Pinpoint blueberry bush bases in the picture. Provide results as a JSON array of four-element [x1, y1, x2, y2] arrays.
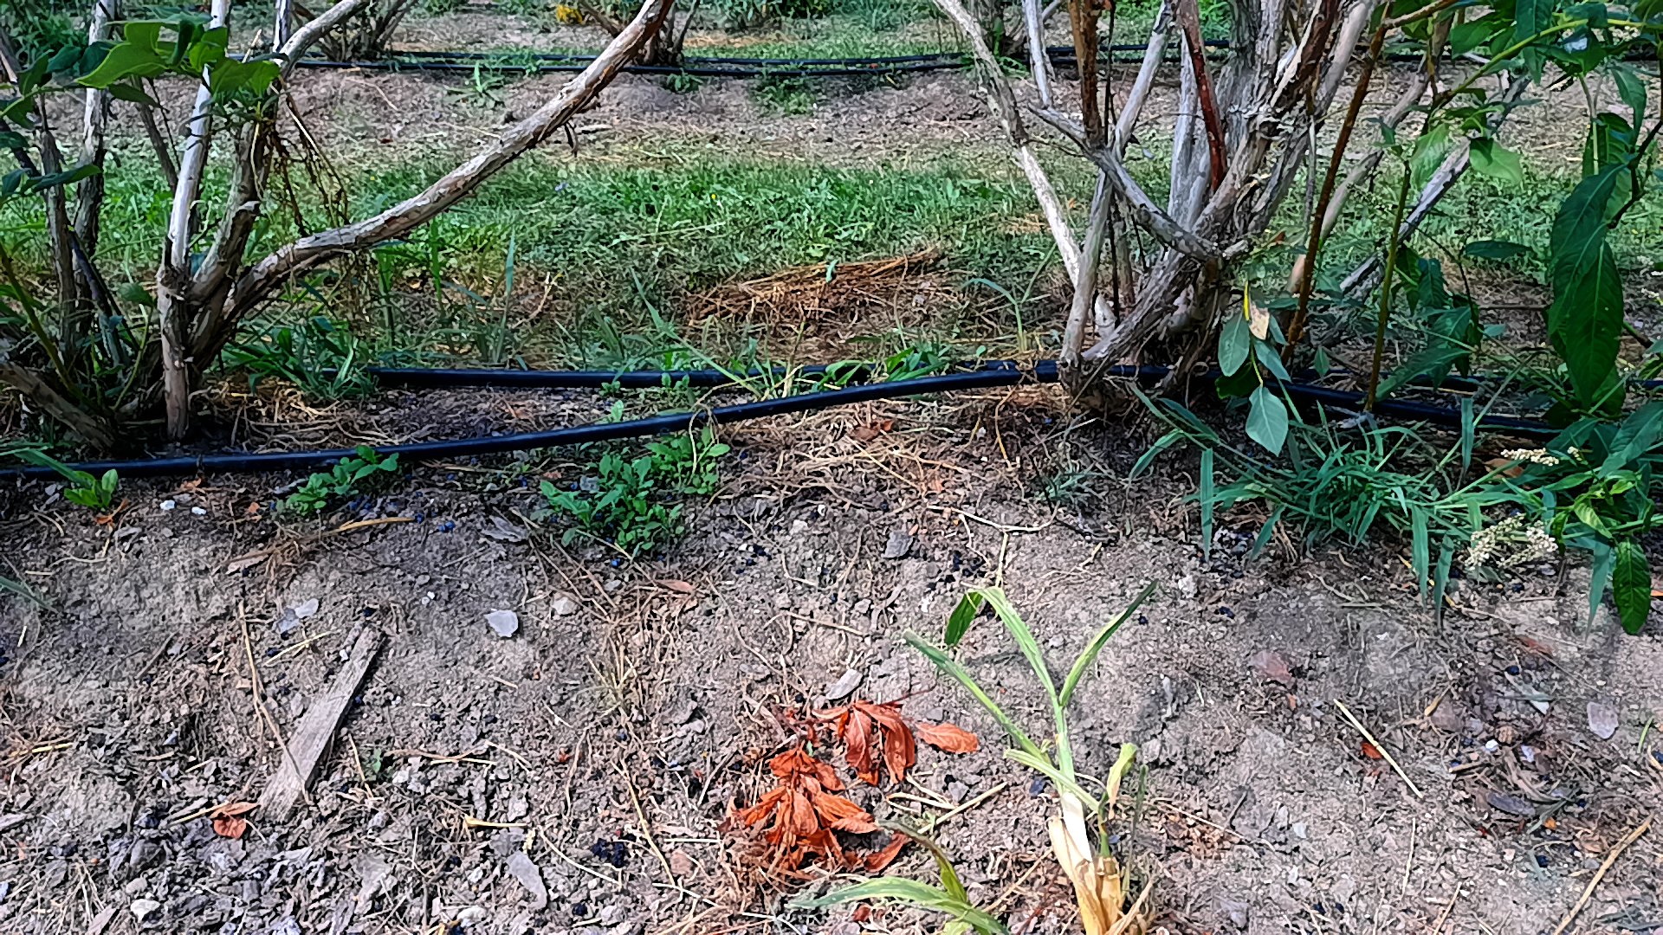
[[991, 139, 1447, 512], [8, 229, 348, 502], [296, 6, 408, 82], [607, 15, 704, 89]]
